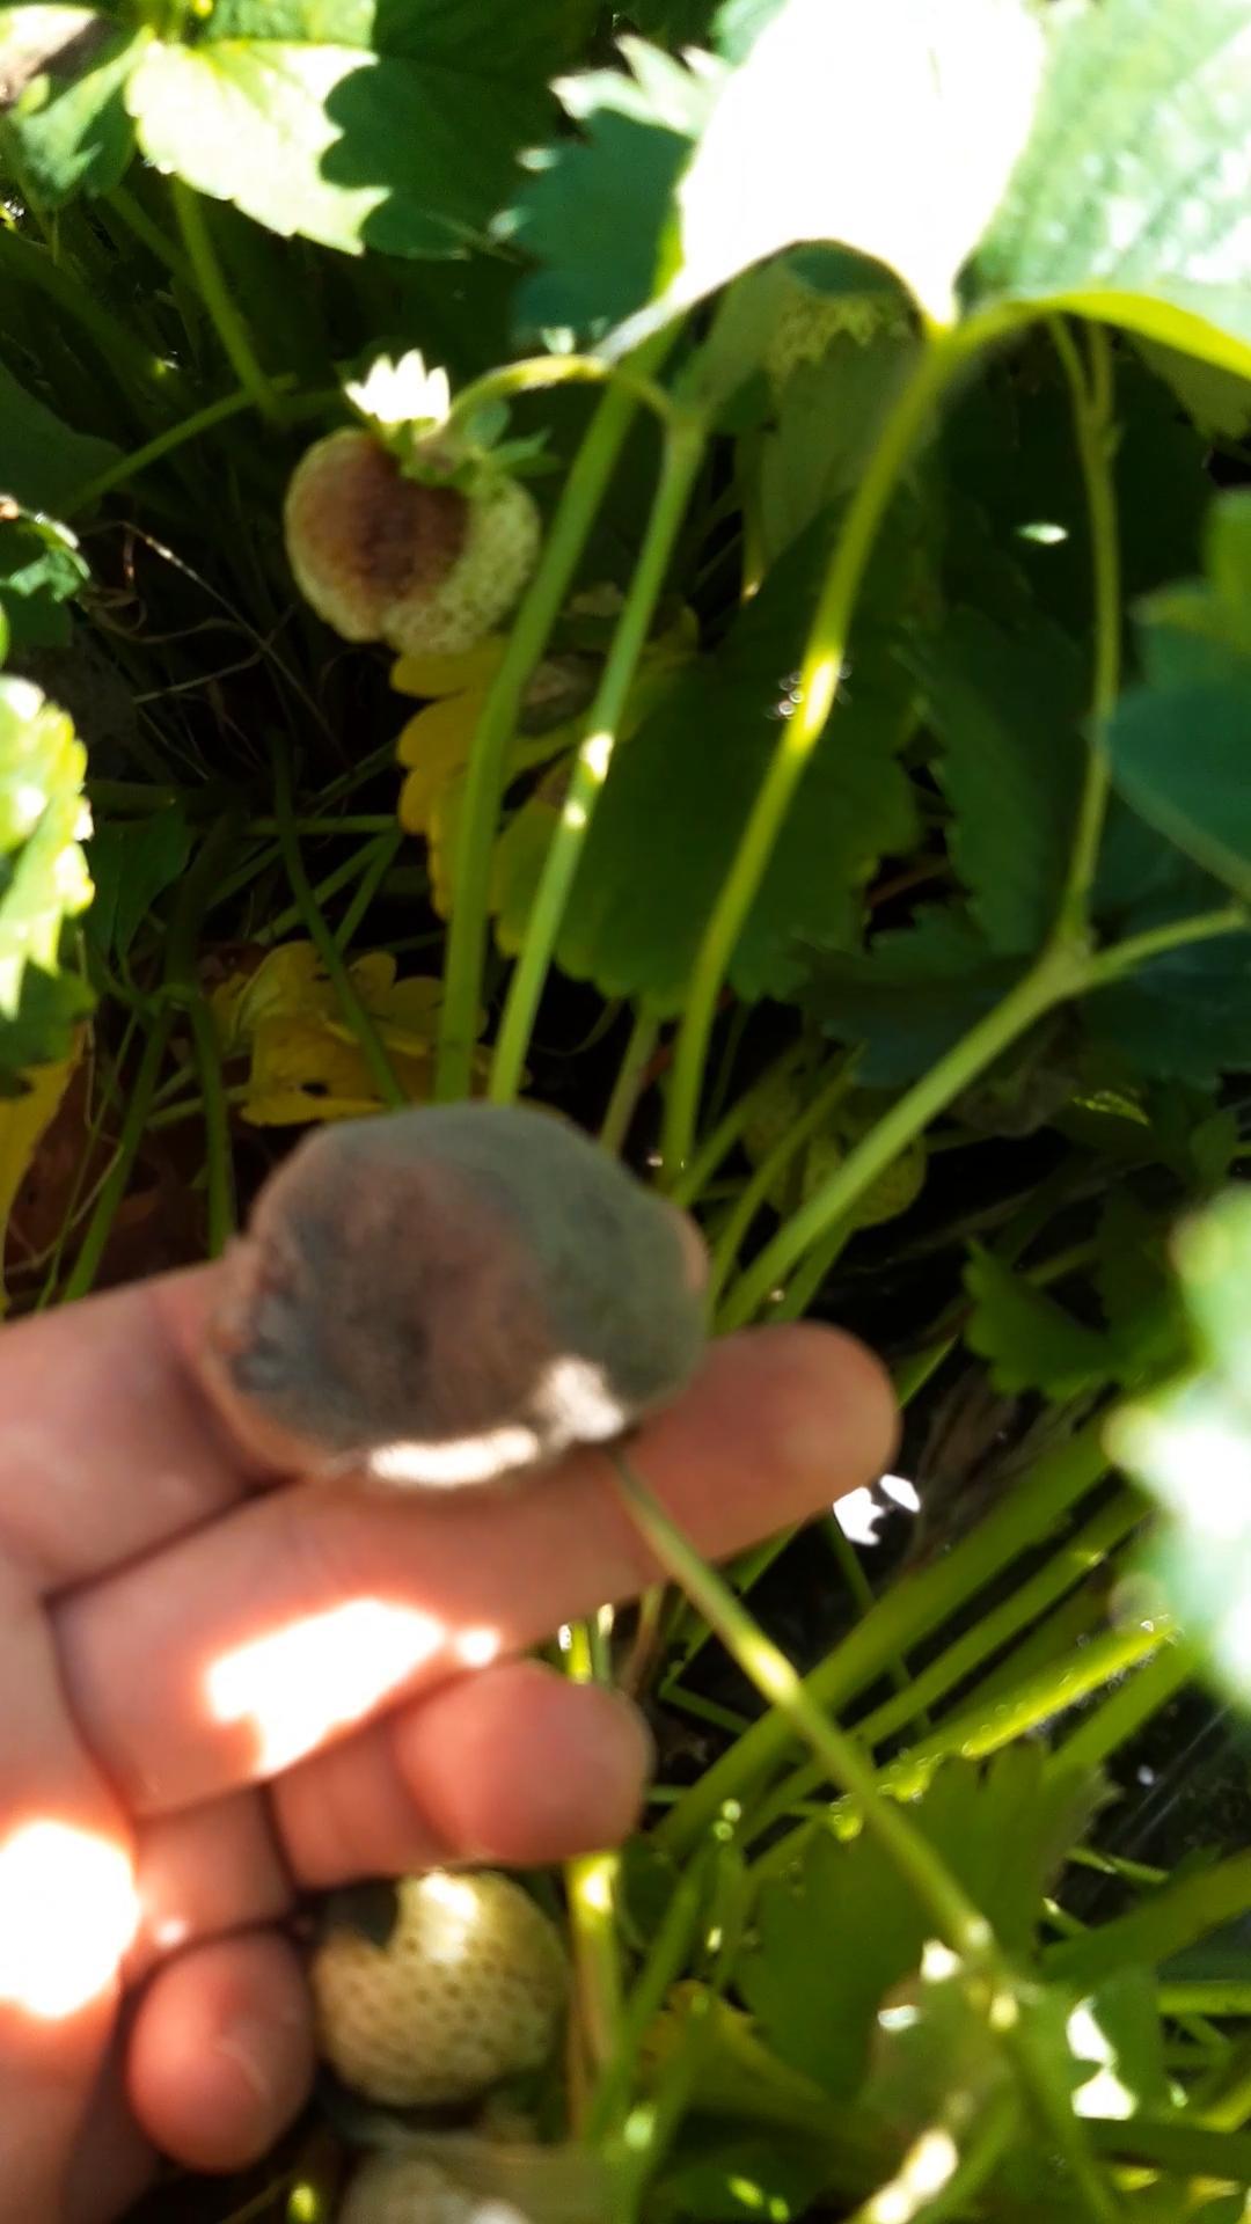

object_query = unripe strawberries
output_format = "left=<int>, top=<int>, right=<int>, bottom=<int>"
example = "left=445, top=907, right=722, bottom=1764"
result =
left=256, top=1837, right=598, bottom=2127
left=281, top=389, right=547, bottom=656
left=231, top=1100, right=727, bottom=1501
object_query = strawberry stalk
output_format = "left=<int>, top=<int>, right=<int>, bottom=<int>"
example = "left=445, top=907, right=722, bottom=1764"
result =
left=383, top=313, right=528, bottom=482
